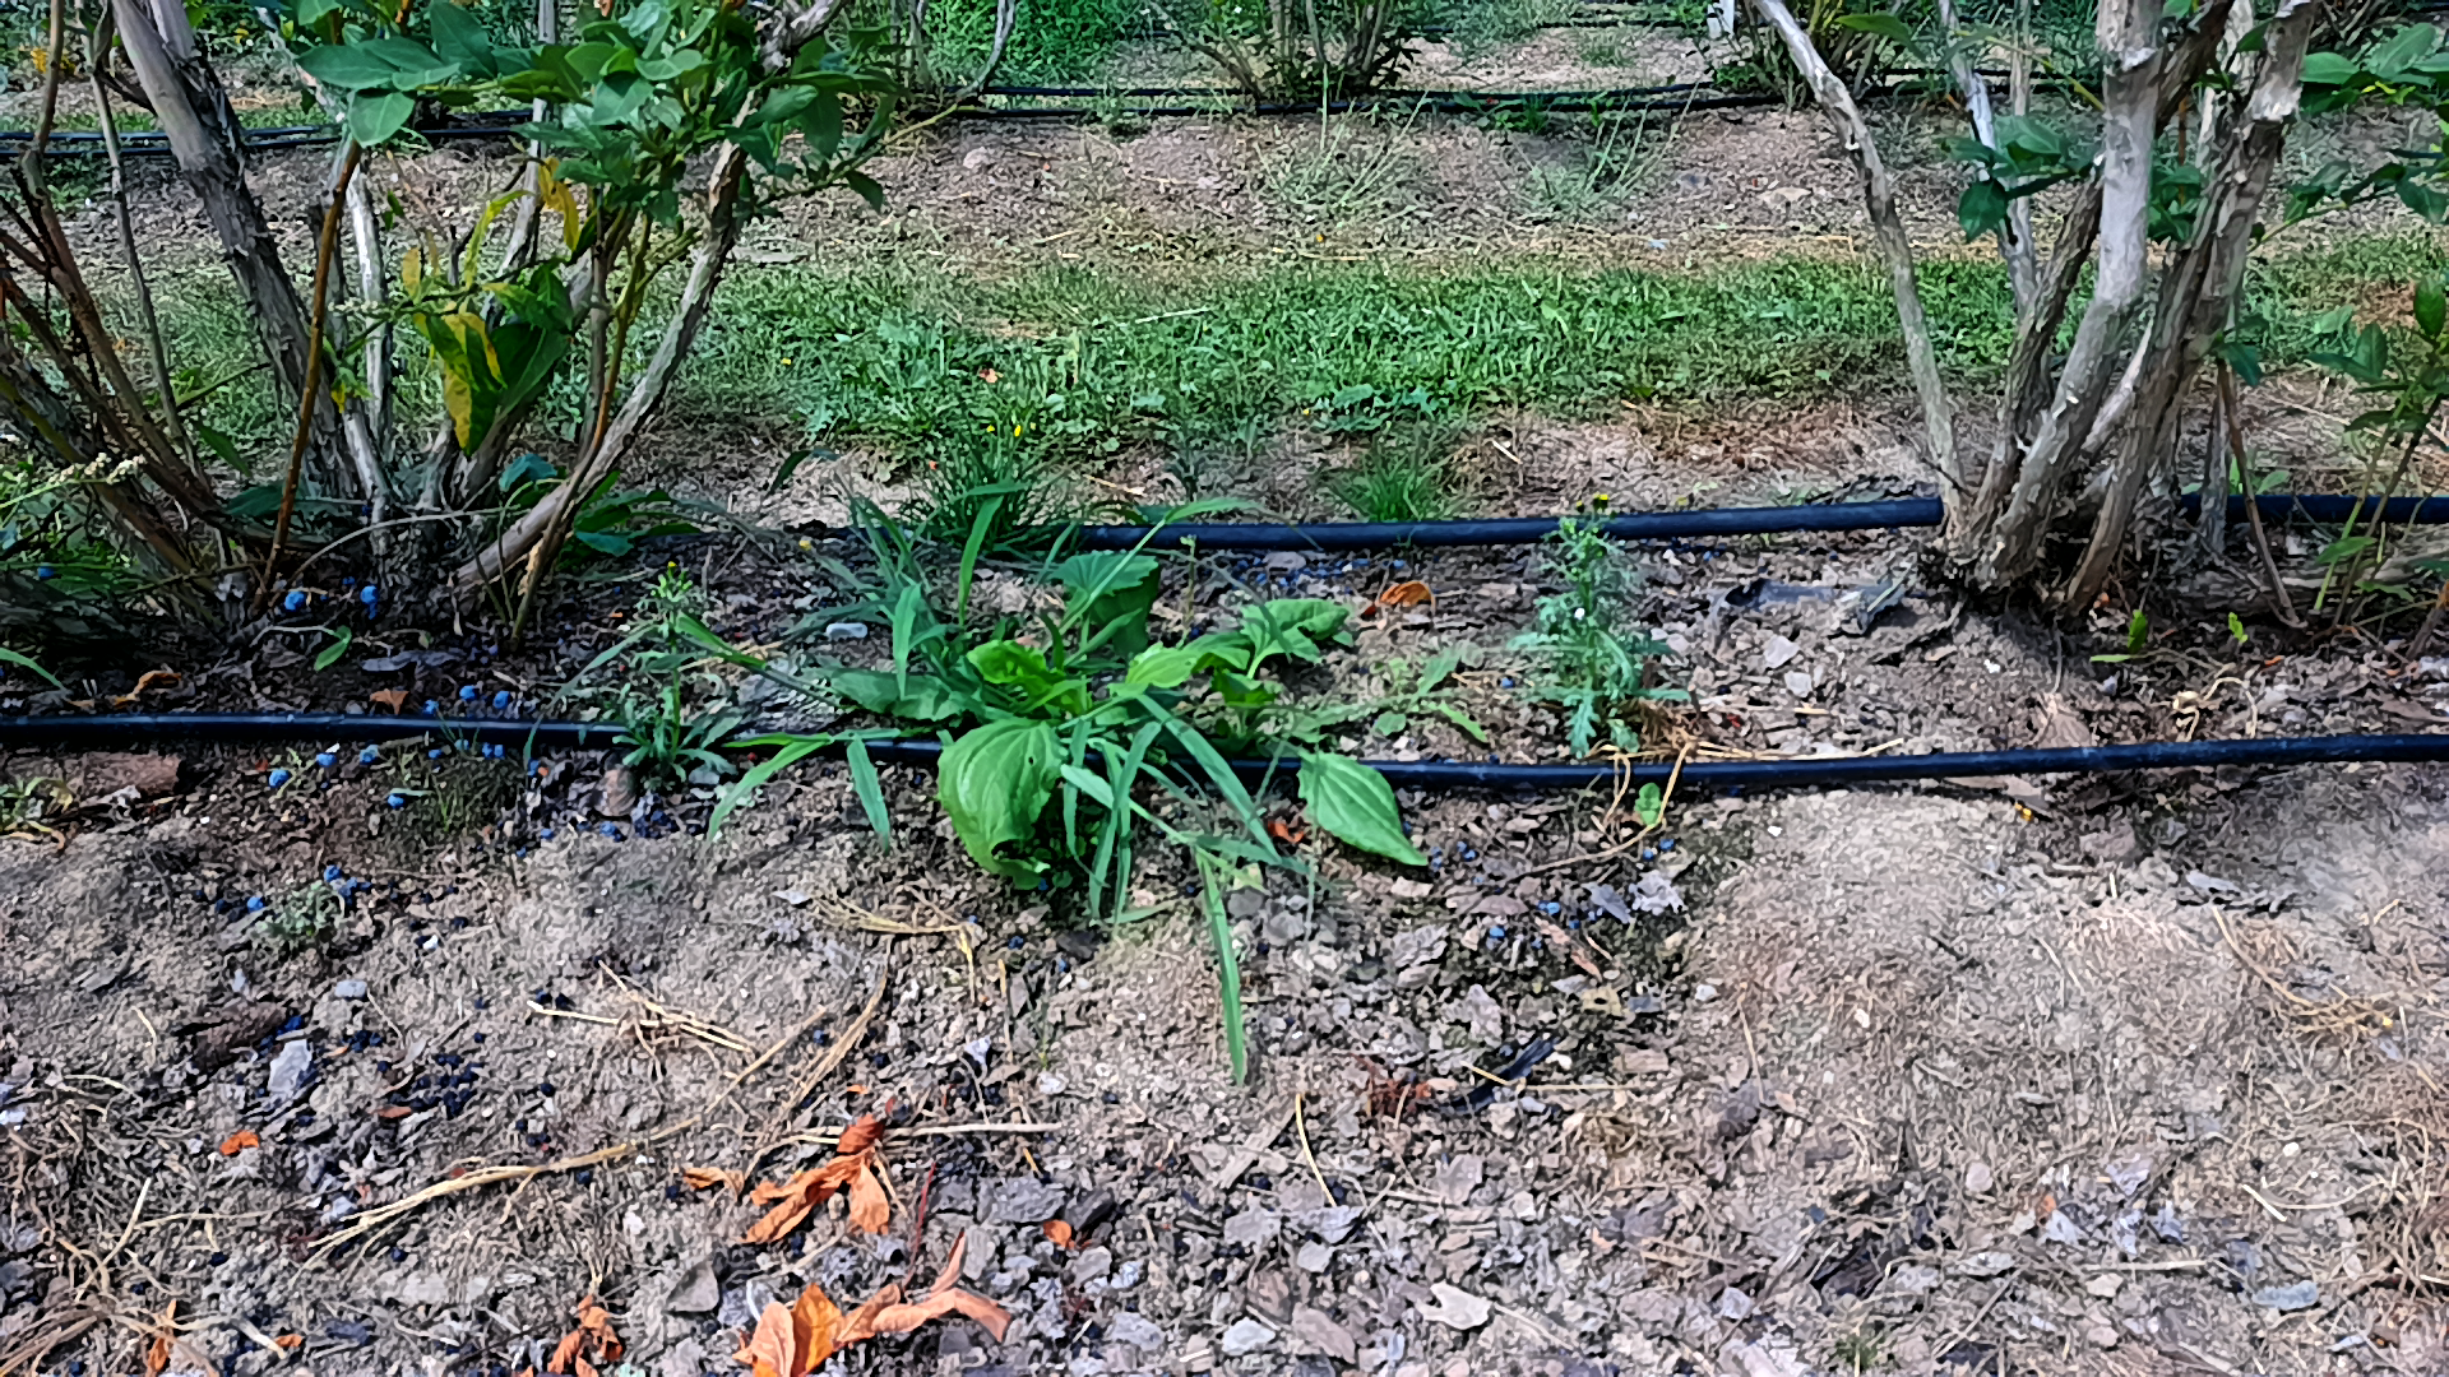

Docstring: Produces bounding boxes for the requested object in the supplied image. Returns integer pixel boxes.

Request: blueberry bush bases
[29,297,680,796]
[1853,213,2329,731]
[1222,27,1423,143]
